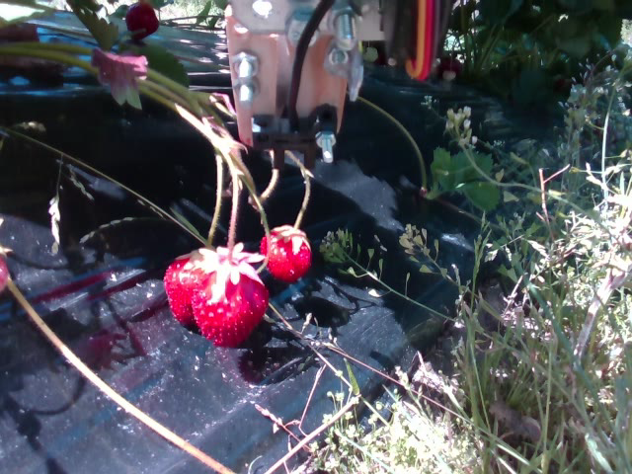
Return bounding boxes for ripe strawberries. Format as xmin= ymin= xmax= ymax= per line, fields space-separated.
xmin=197 ymin=269 xmax=266 ymax=341
xmin=166 ymin=255 xmax=229 ymax=324
xmin=265 ymin=229 xmax=319 ymax=278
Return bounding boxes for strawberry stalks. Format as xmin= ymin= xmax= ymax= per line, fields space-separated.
xmin=220 ymin=178 xmax=251 ymax=277
xmin=199 ymin=164 xmax=224 ymax=272
xmin=280 ymin=171 xmax=316 ymax=240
